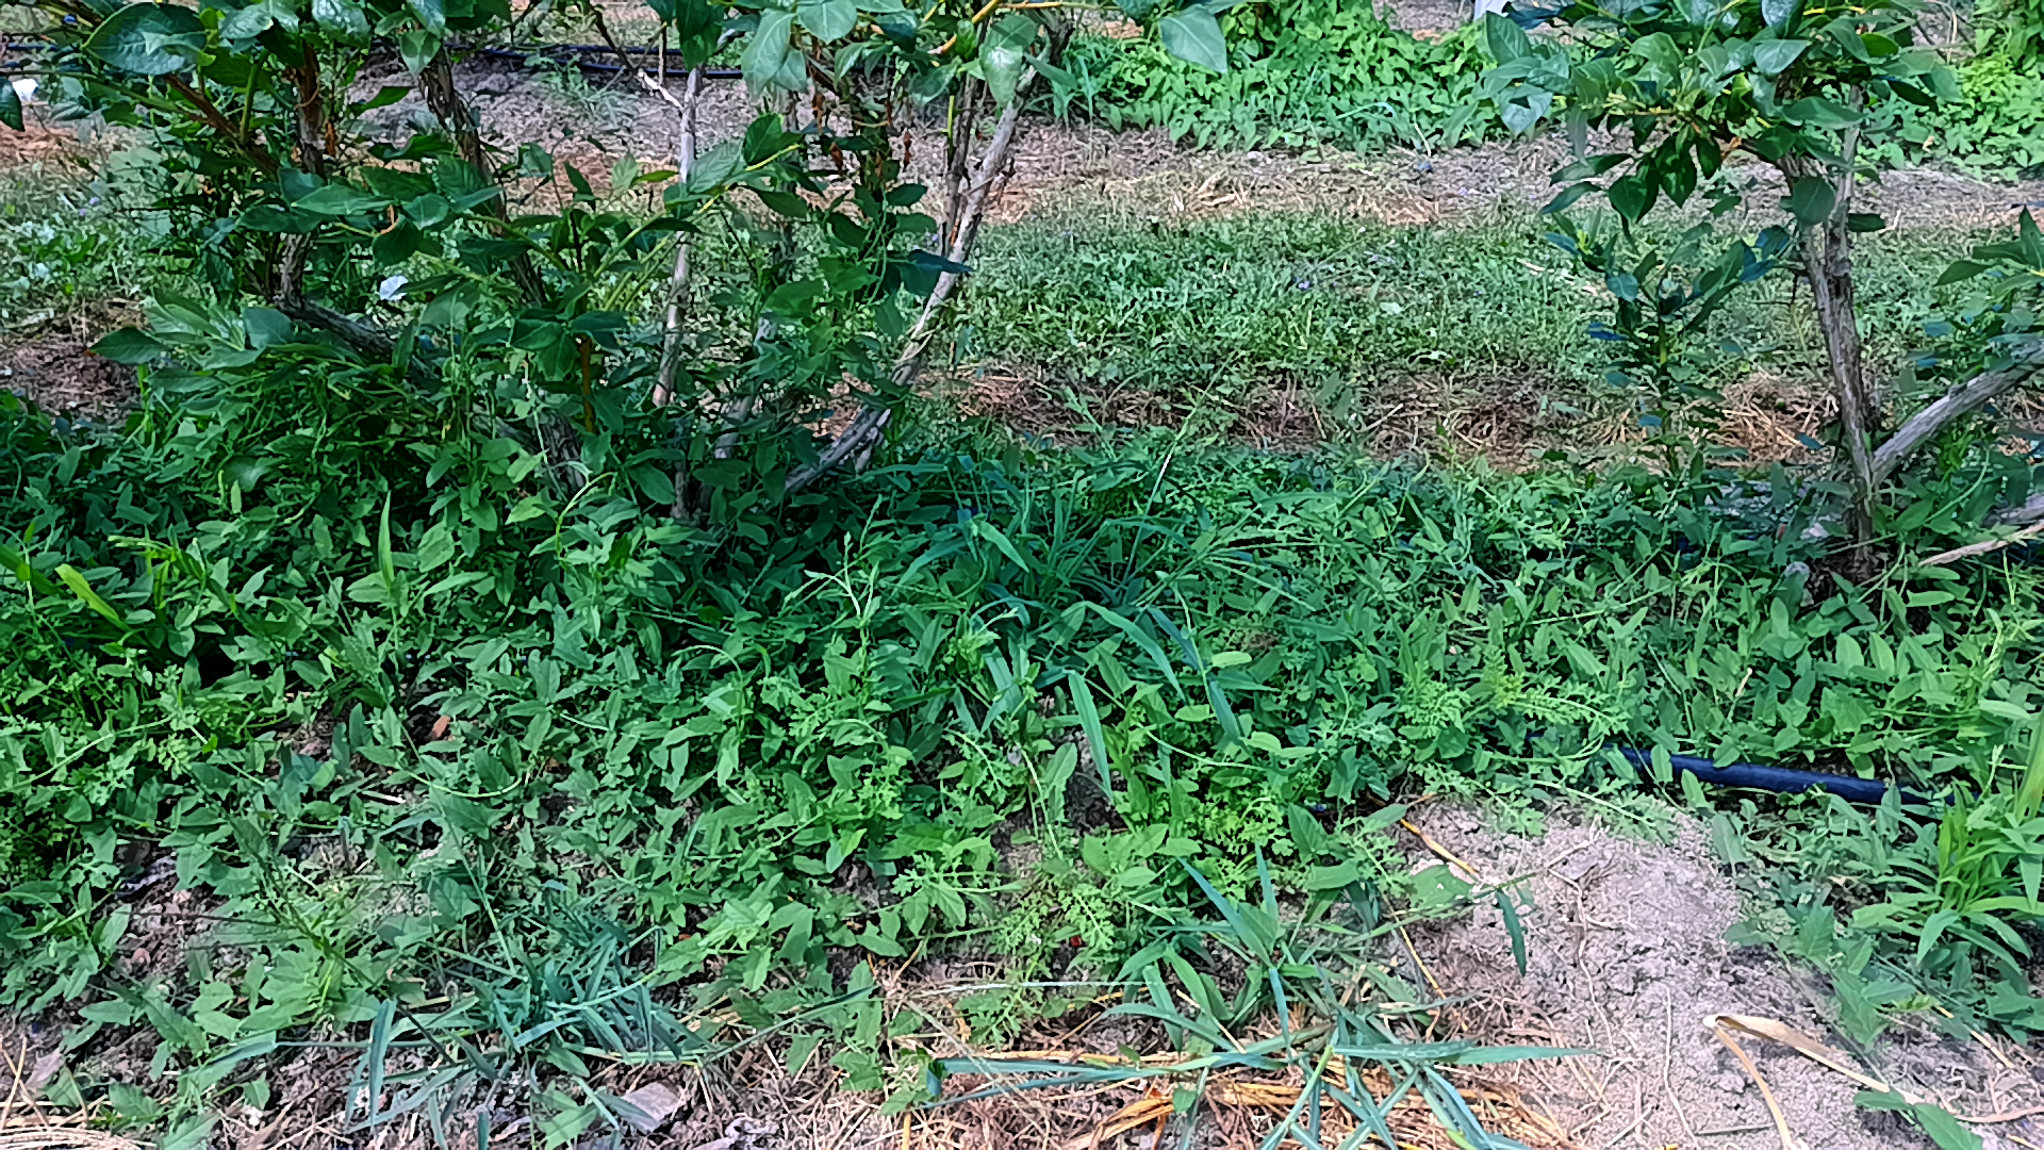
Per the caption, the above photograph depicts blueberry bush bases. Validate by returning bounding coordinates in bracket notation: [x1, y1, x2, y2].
[1747, 333, 2025, 711]
[112, 202, 994, 669]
